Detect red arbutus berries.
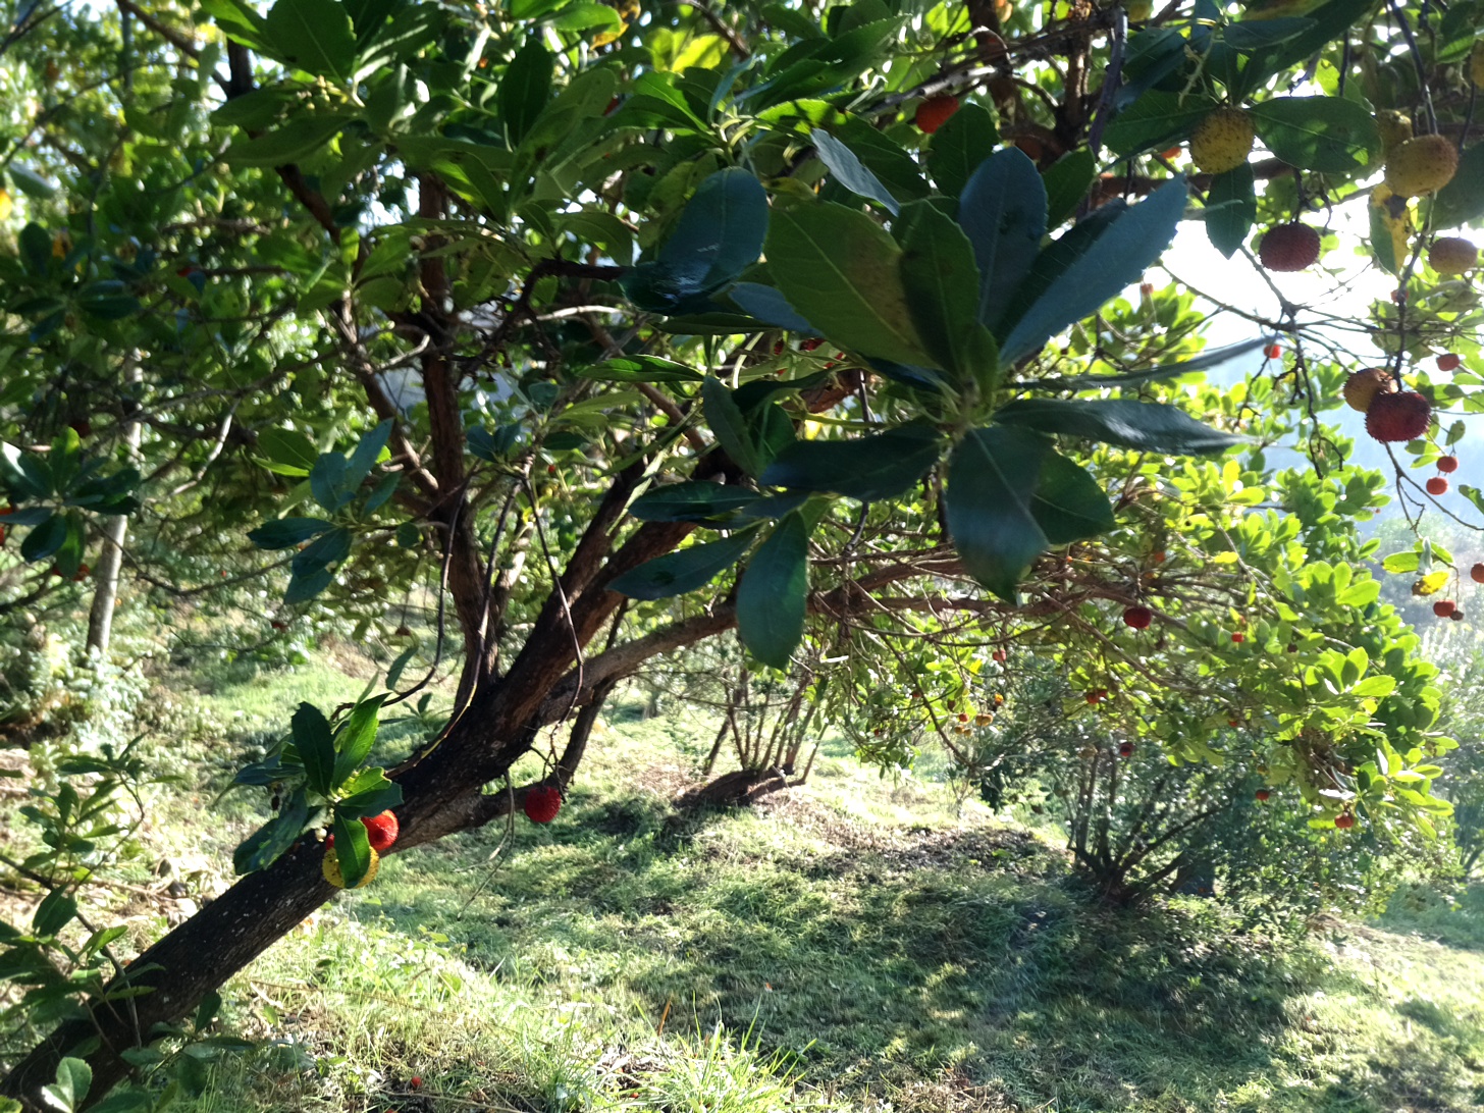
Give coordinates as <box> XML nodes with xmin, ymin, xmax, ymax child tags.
<box><xmin>1334</xmin><ymin>814</ymin><xmax>1350</xmax><ymax>828</ymax></box>
<box><xmin>1433</xmin><ymin>599</ymin><xmax>1454</xmax><ymax>616</ymax></box>
<box><xmin>1470</xmin><ymin>562</ymin><xmax>1484</xmax><ymax>584</ymax></box>
<box><xmin>914</xmin><ymin>95</ymin><xmax>962</xmax><ymax>135</ymax></box>
<box><xmin>959</xmin><ymin>714</ymin><xmax>969</xmax><ymax>722</ymax></box>
<box><xmin>1120</xmin><ymin>746</ymin><xmax>1130</xmax><ymax>756</ymax></box>
<box><xmin>1124</xmin><ymin>606</ymin><xmax>1152</xmax><ymax>629</ymax></box>
<box><xmin>1264</xmin><ymin>345</ymin><xmax>1280</xmax><ymax>360</ymax></box>
<box><xmin>912</xmin><ymin>690</ymin><xmax>921</xmax><ymax>698</ymax></box>
<box><xmin>1096</xmin><ymin>688</ymin><xmax>1106</xmax><ymax>697</ymax></box>
<box><xmin>525</xmin><ymin>786</ymin><xmax>562</xmax><ymax>822</ymax></box>
<box><xmin>1437</xmin><ymin>352</ymin><xmax>1459</xmax><ymax>371</ymax></box>
<box><xmin>1437</xmin><ymin>456</ymin><xmax>1459</xmax><ymax>473</ymax></box>
<box><xmin>1232</xmin><ymin>632</ymin><xmax>1244</xmax><ymax>643</ymax></box>
<box><xmin>993</xmin><ymin>650</ymin><xmax>1007</xmax><ymax>661</ymax></box>
<box><xmin>1256</xmin><ymin>789</ymin><xmax>1269</xmax><ymax>800</ymax></box>
<box><xmin>1365</xmin><ymin>390</ymin><xmax>1430</xmax><ymax>442</ymax></box>
<box><xmin>1086</xmin><ymin>693</ymin><xmax>1099</xmax><ymax>704</ymax></box>
<box><xmin>1259</xmin><ymin>223</ymin><xmax>1320</xmax><ymax>273</ymax></box>
<box><xmin>1426</xmin><ymin>477</ymin><xmax>1447</xmax><ymax>495</ymax></box>
<box><xmin>353</xmin><ymin>809</ymin><xmax>399</xmax><ymax>851</ymax></box>
<box><xmin>1229</xmin><ymin>716</ymin><xmax>1240</xmax><ymax>727</ymax></box>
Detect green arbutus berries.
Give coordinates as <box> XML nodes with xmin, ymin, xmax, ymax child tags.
<box><xmin>1188</xmin><ymin>106</ymin><xmax>1255</xmax><ymax>173</ymax></box>
<box><xmin>1382</xmin><ymin>134</ymin><xmax>1460</xmax><ymax>197</ymax></box>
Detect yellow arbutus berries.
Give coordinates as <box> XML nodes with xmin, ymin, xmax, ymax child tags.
<box><xmin>976</xmin><ymin>714</ymin><xmax>989</xmax><ymax>725</ymax></box>
<box><xmin>993</xmin><ymin>692</ymin><xmax>1003</xmax><ymax>705</ymax></box>
<box><xmin>963</xmin><ymin>728</ymin><xmax>971</xmax><ymax>736</ymax></box>
<box><xmin>954</xmin><ymin>725</ymin><xmax>964</xmax><ymax>734</ymax></box>
<box><xmin>1344</xmin><ymin>367</ymin><xmax>1393</xmax><ymax>413</ymax></box>
<box><xmin>322</xmin><ymin>843</ymin><xmax>380</xmax><ymax>888</ymax></box>
<box><xmin>983</xmin><ymin>714</ymin><xmax>992</xmax><ymax>723</ymax></box>
<box><xmin>1428</xmin><ymin>235</ymin><xmax>1478</xmax><ymax>275</ymax></box>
